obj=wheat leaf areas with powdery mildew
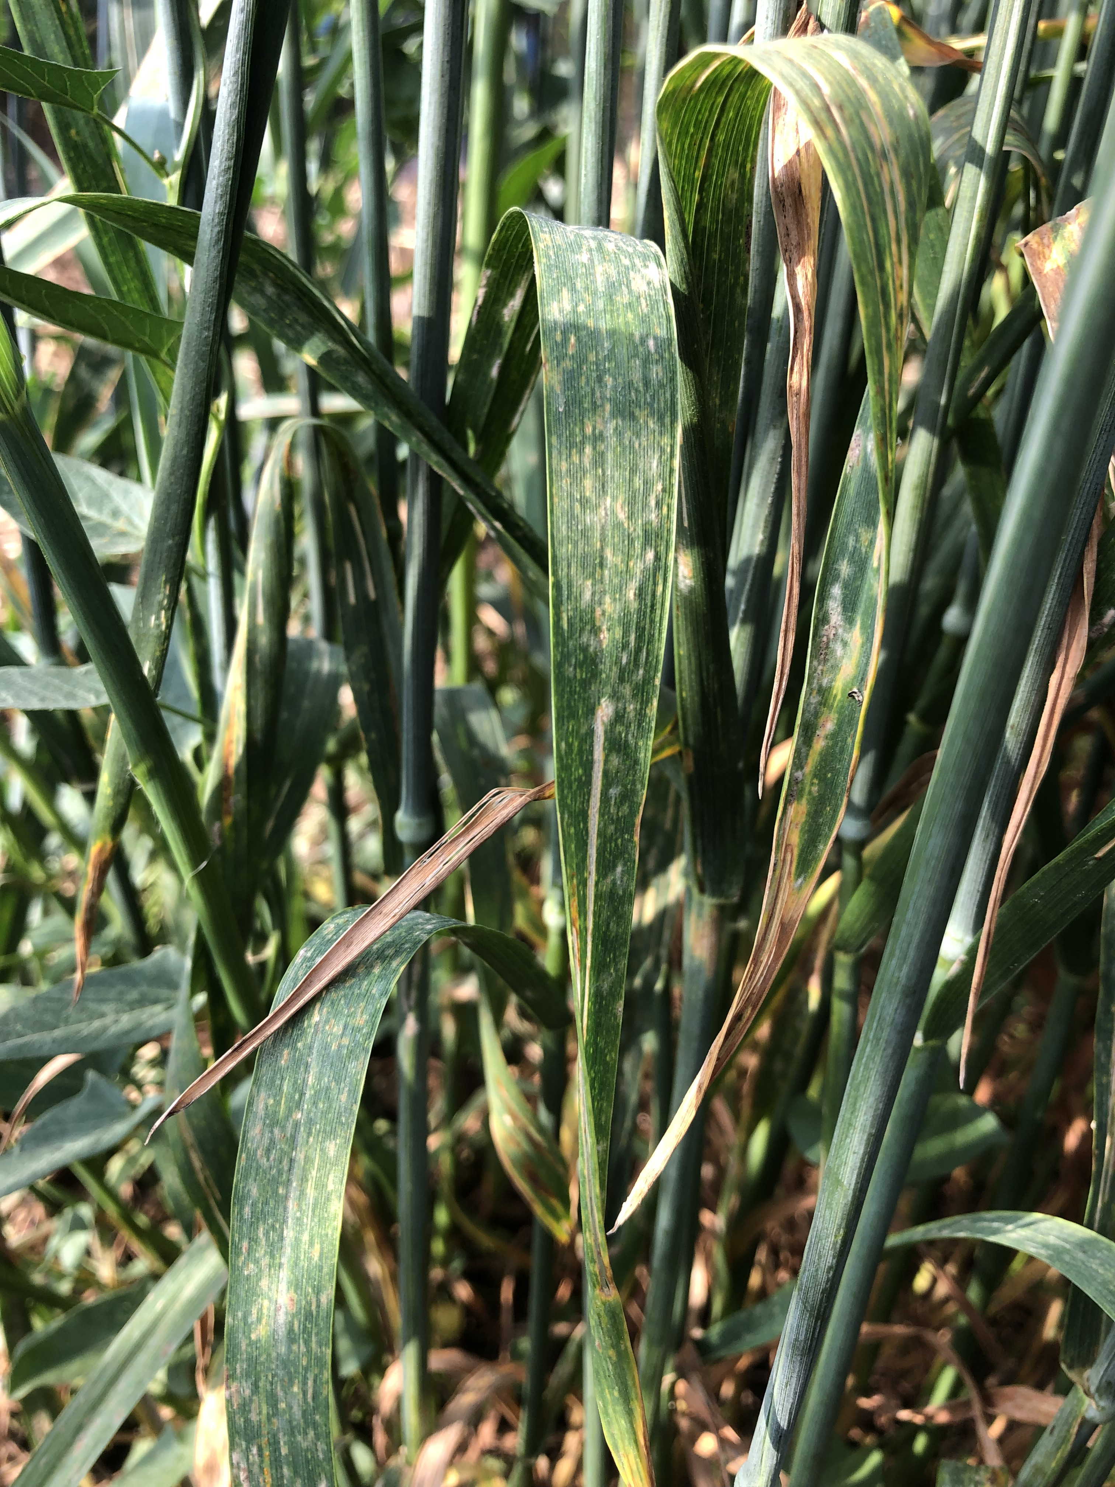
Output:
[465,253,541,359]
[520,214,698,915]
[817,486,899,818]
[221,1033,385,1480]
